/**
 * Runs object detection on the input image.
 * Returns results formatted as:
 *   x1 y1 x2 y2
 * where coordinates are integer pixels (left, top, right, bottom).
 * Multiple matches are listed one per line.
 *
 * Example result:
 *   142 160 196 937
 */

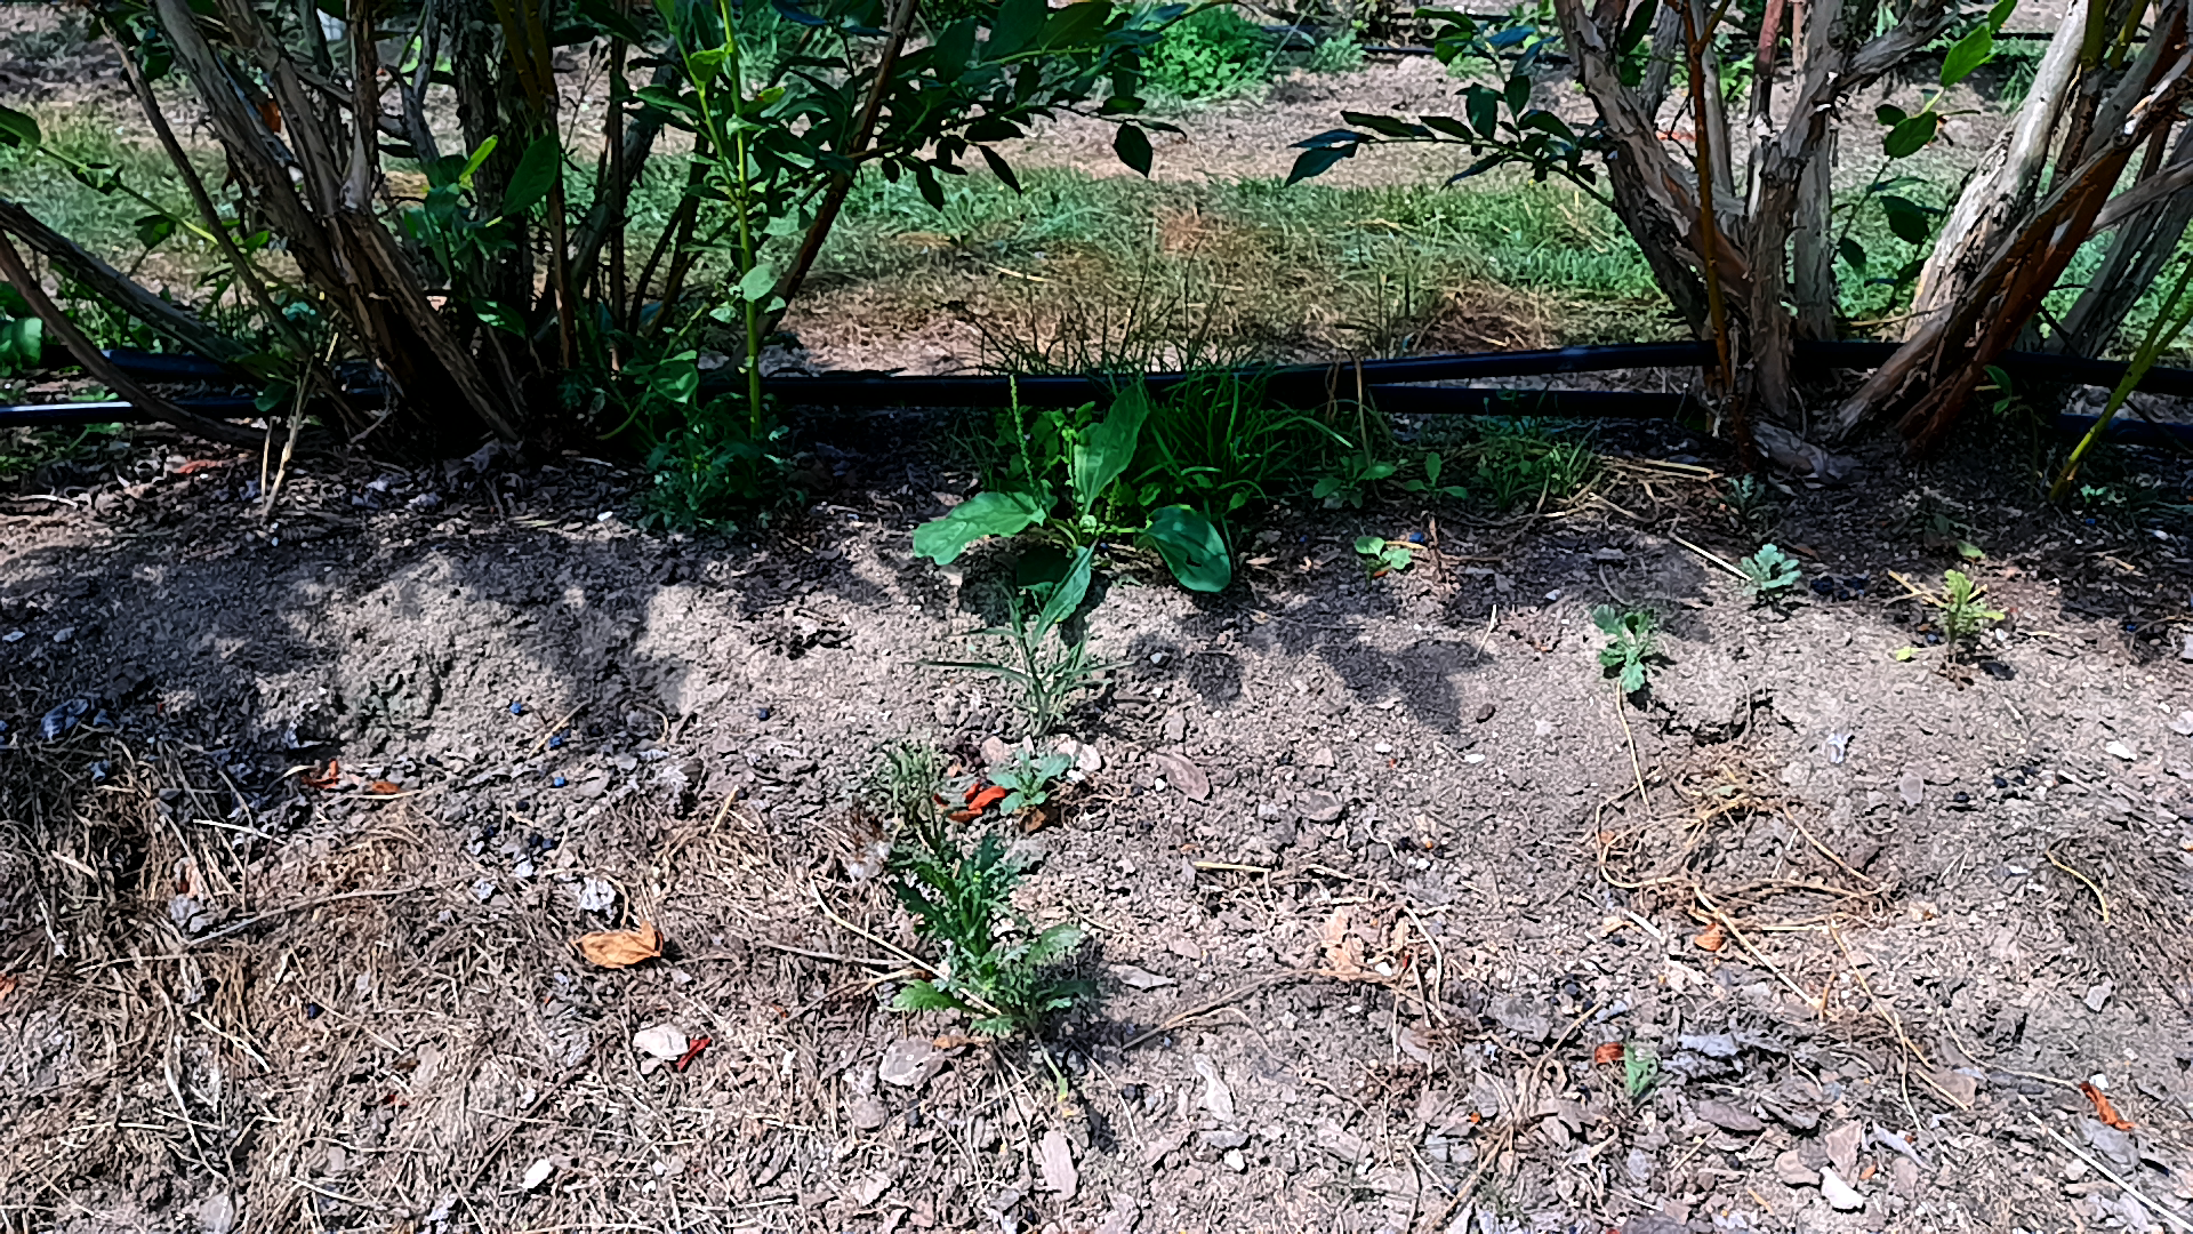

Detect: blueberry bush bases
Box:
1591 91 2193 552
140 175 808 542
